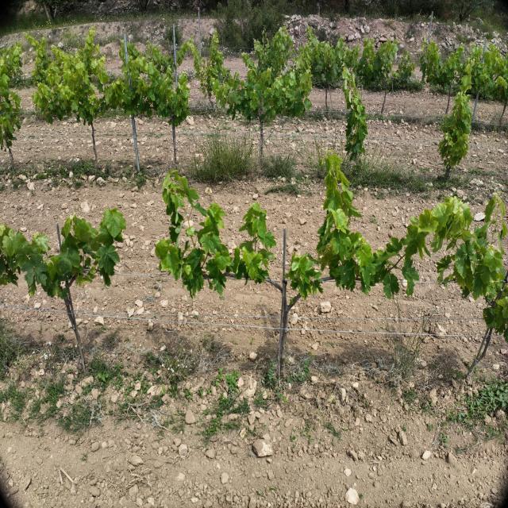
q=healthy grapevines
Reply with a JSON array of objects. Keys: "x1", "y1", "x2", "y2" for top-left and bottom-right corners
[
  {"x1": 0, "y1": 195, "x2": 136, "y2": 388},
  {"x1": 152, "y1": 145, "x2": 436, "y2": 409},
  {"x1": 430, "y1": 175, "x2": 508, "y2": 398}
]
